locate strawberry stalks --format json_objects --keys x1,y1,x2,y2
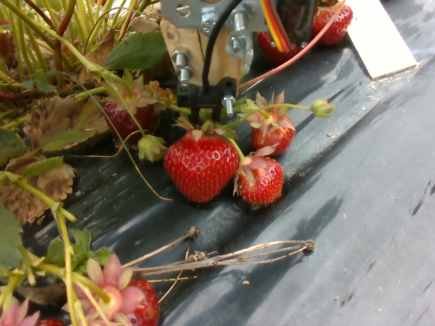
[
  {"x1": 217, "y1": 126, "x2": 255, "y2": 171},
  {"x1": 190, "y1": 108, "x2": 216, "y2": 145},
  {"x1": 39, "y1": 257, "x2": 119, "y2": 309},
  {"x1": 242, "y1": 102, "x2": 282, "y2": 124},
  {"x1": 109, "y1": 71, "x2": 137, "y2": 109}
]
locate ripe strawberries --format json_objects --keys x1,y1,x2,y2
[
  {"x1": 163, "y1": 132, "x2": 242, "y2": 203},
  {"x1": 310, "y1": 1, "x2": 355, "y2": 45},
  {"x1": 250, "y1": 114, "x2": 294, "y2": 156},
  {"x1": 104, "y1": 94, "x2": 152, "y2": 139},
  {"x1": 89, "y1": 271, "x2": 163, "y2": 326},
  {"x1": 238, "y1": 156, "x2": 286, "y2": 207}
]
